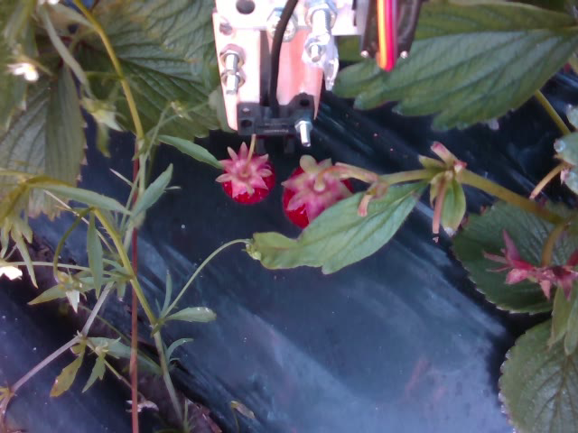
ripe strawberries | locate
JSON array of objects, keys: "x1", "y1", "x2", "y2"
[
  {"x1": 223, "y1": 155, "x2": 275, "y2": 204},
  {"x1": 285, "y1": 171, "x2": 347, "y2": 228}
]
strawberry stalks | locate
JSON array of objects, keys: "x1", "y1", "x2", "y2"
[
  {"x1": 308, "y1": 161, "x2": 360, "y2": 196},
  {"x1": 235, "y1": 130, "x2": 264, "y2": 181}
]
